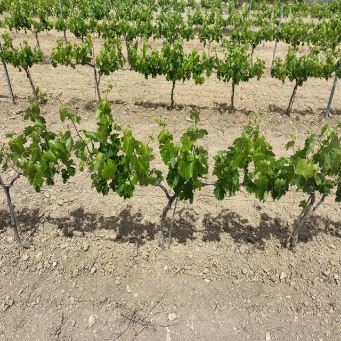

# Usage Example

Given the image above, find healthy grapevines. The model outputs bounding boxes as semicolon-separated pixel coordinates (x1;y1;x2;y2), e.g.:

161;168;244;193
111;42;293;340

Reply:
248;126;341;258
0;104;76;255
79;101;248;253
